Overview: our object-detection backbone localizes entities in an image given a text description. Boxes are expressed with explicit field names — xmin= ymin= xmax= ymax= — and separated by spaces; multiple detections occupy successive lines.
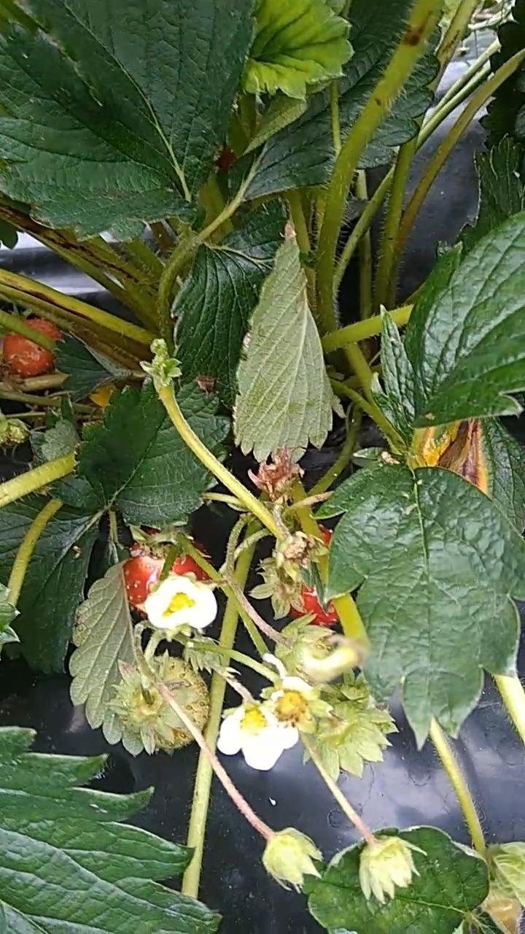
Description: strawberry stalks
xmin=247 ymin=501 xmax=305 ymax=590
xmin=220 ymin=784 xmax=282 ymax=843
xmin=139 ymin=498 xmax=179 ymax=584
xmin=324 ymin=792 xmax=392 ymax=850
xmin=127 ymin=628 xmax=166 ymax=719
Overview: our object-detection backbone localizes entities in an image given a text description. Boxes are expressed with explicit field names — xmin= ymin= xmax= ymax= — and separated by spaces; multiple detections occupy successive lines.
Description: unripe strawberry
xmin=116 ymin=657 xmax=211 ymax=752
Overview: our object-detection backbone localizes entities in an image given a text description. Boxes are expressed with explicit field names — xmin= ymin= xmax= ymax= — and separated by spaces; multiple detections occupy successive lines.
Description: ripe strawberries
xmin=257 ymin=526 xmax=364 ymax=629
xmin=0 ymin=321 xmax=71 ymax=383
xmin=118 ymin=539 xmax=207 ymax=597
